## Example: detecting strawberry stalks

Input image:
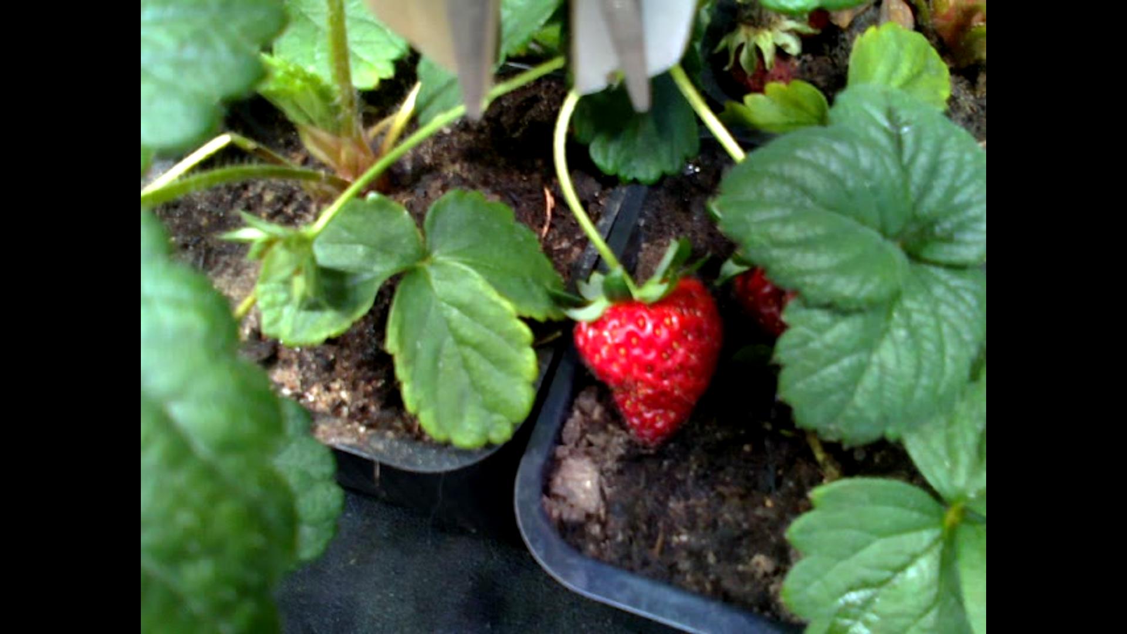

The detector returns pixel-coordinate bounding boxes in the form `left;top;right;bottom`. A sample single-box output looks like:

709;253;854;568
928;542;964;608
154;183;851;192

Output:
664;76;823;260
528;100;666;323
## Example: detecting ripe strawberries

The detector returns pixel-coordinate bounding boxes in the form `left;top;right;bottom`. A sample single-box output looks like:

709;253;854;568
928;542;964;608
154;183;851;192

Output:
566;272;727;452
733;222;870;368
